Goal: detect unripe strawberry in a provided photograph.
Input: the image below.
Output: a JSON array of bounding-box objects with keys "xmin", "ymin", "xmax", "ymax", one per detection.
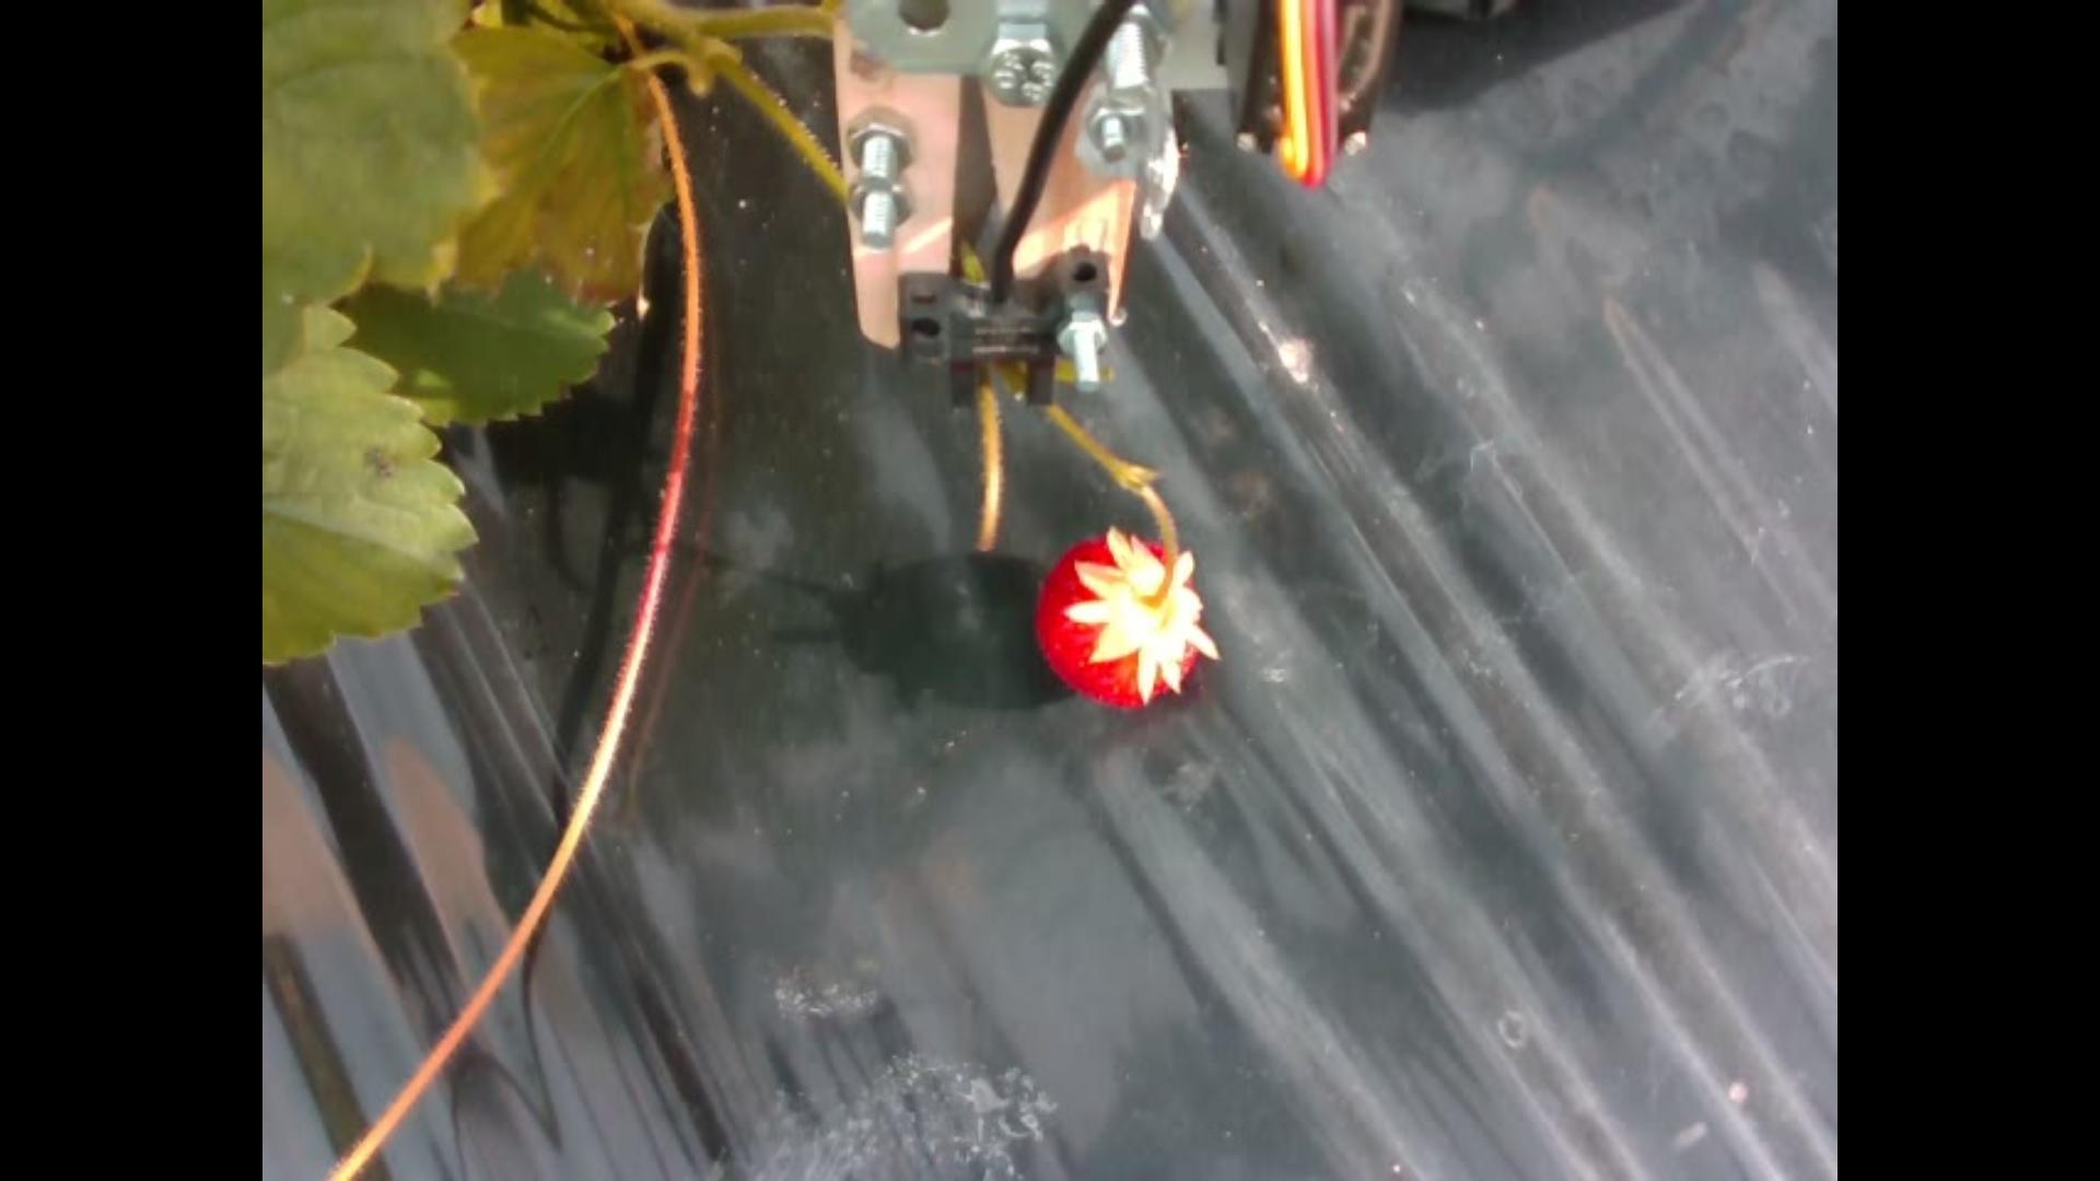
[{"xmin": 1131, "ymin": 497, "xmax": 1191, "ymax": 620}]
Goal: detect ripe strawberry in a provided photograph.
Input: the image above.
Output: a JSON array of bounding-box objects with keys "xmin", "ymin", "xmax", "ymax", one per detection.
[{"xmin": 1041, "ymin": 519, "xmax": 1215, "ymax": 721}]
